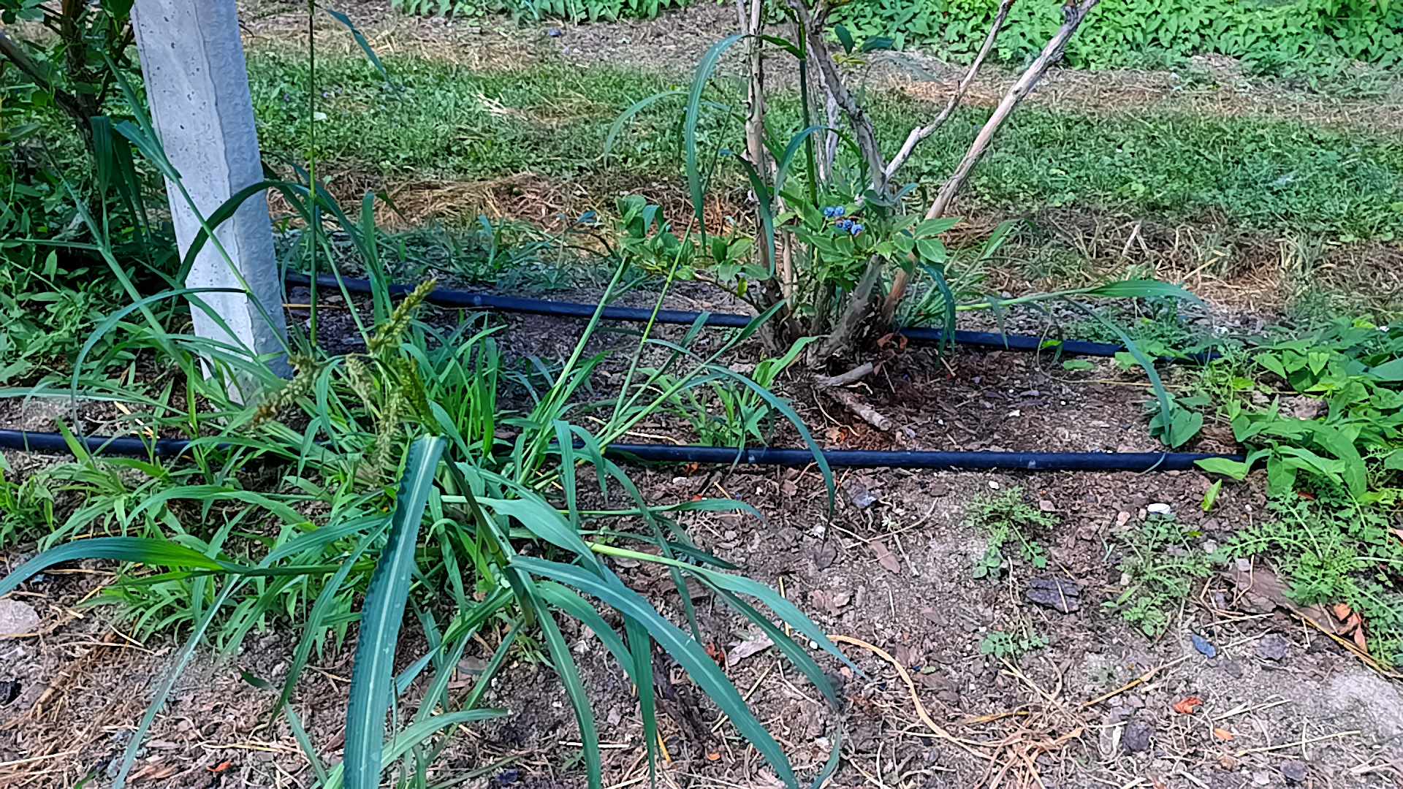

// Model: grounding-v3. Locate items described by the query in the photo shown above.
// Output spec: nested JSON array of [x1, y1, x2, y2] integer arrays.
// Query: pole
[[156, 15, 309, 415]]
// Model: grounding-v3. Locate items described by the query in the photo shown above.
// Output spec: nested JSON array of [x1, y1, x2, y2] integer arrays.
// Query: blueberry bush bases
[[699, 153, 984, 441], [12, 21, 133, 285]]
